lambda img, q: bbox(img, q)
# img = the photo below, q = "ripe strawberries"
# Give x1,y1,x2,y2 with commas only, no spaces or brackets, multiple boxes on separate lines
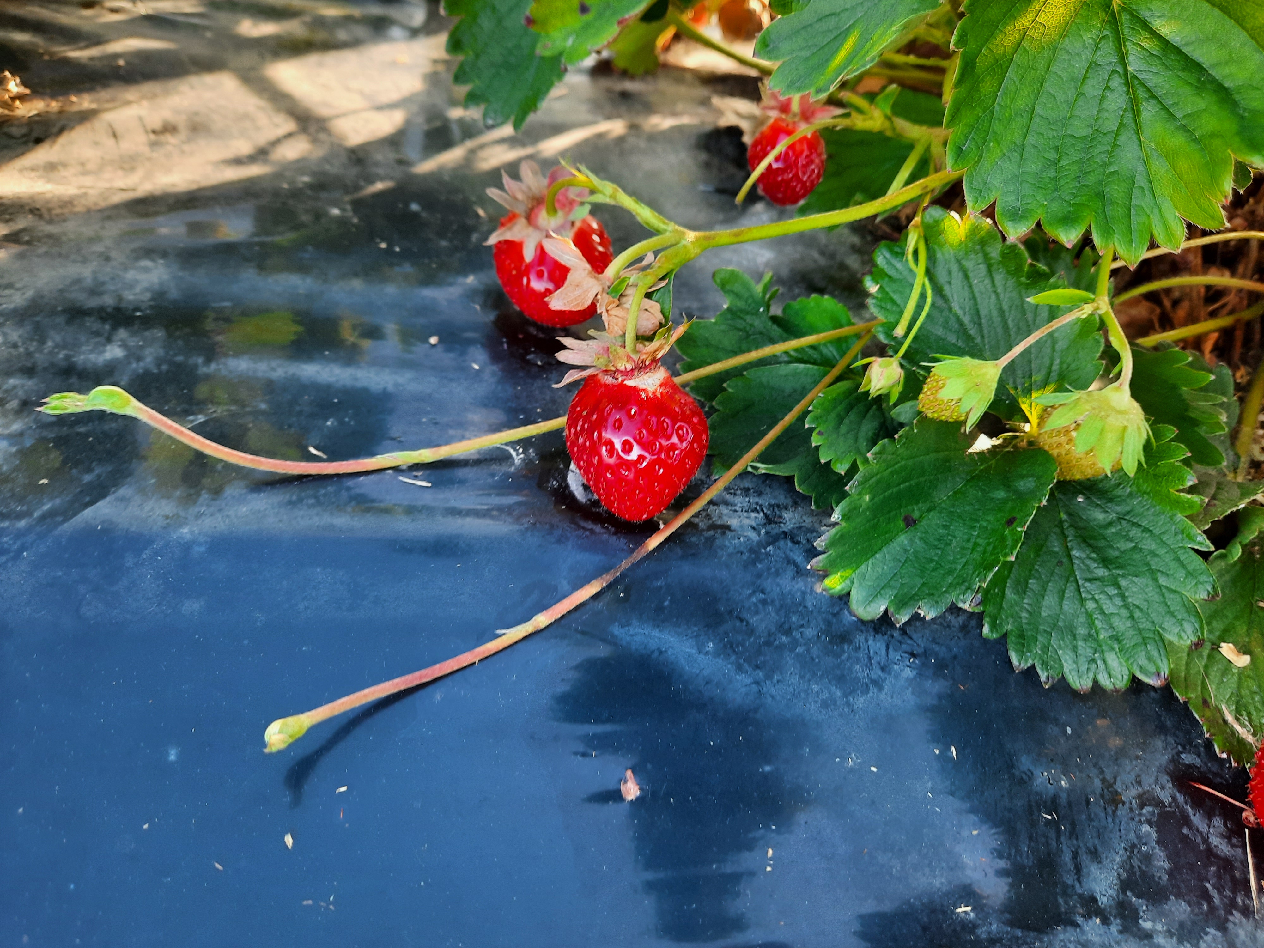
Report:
738,111,825,205
483,205,603,339
574,366,711,528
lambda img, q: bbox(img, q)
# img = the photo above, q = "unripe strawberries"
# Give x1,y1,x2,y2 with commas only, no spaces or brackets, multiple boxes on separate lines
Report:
1048,398,1125,480
910,354,1002,430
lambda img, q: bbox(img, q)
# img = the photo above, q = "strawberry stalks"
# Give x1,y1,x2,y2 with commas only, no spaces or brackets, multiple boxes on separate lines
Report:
625,254,674,403
780,58,814,147
992,303,1106,368
525,171,624,222
1099,298,1141,403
